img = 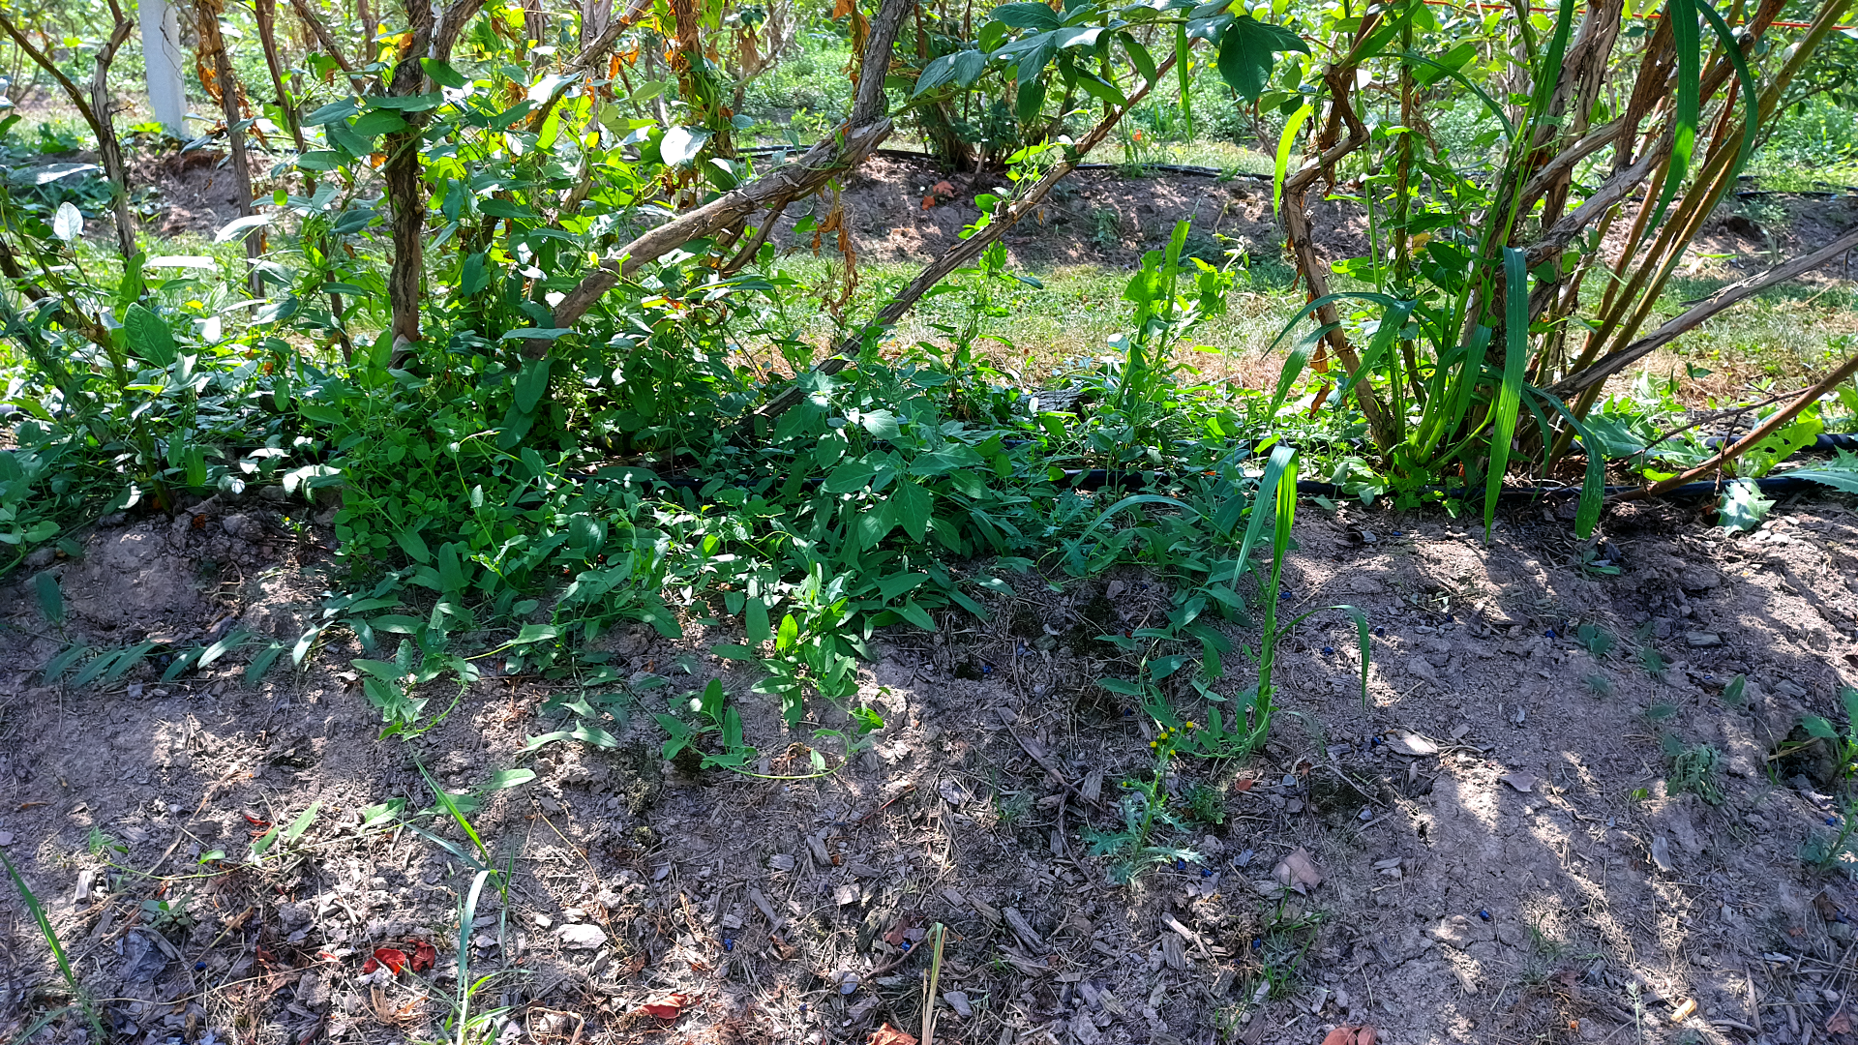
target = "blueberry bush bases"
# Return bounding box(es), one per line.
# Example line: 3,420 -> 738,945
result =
1298,277 -> 1736,583
13,196 -> 718,627
902,101 -> 1086,211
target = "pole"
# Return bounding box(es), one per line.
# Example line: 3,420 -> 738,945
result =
135,11 -> 196,152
